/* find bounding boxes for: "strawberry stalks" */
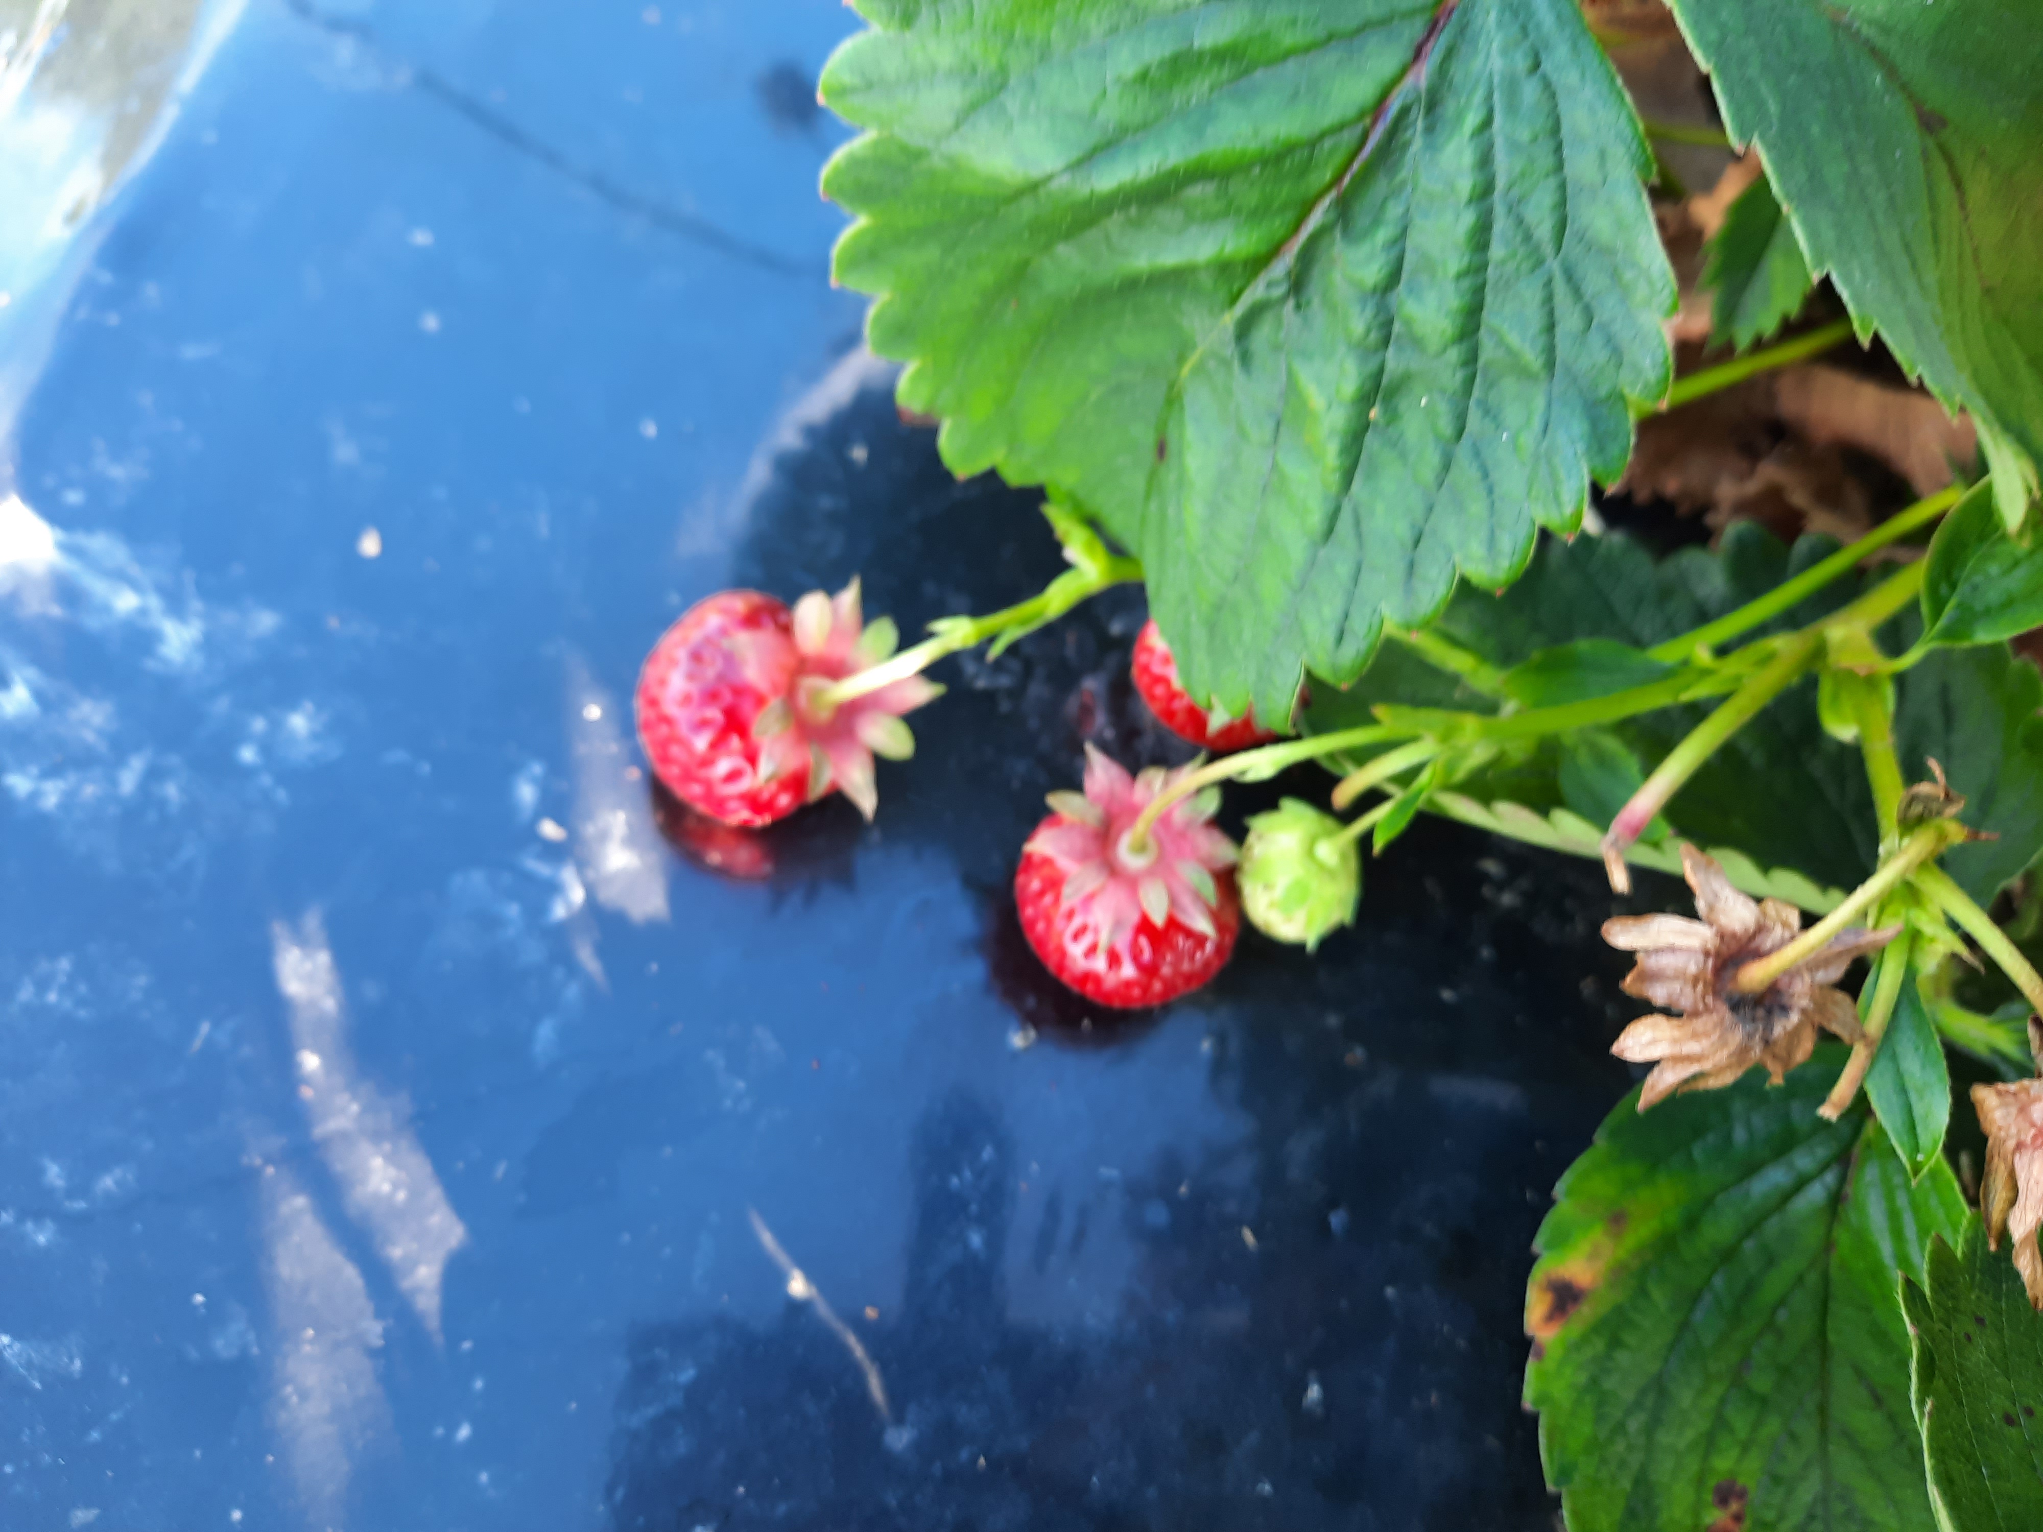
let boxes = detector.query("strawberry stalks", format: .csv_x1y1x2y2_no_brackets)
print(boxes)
1106,718,1326,866
774,612,1088,744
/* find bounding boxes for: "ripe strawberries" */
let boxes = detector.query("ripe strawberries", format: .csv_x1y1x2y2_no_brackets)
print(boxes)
647,612,884,819
1029,798,1238,1001
1123,589,1319,749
